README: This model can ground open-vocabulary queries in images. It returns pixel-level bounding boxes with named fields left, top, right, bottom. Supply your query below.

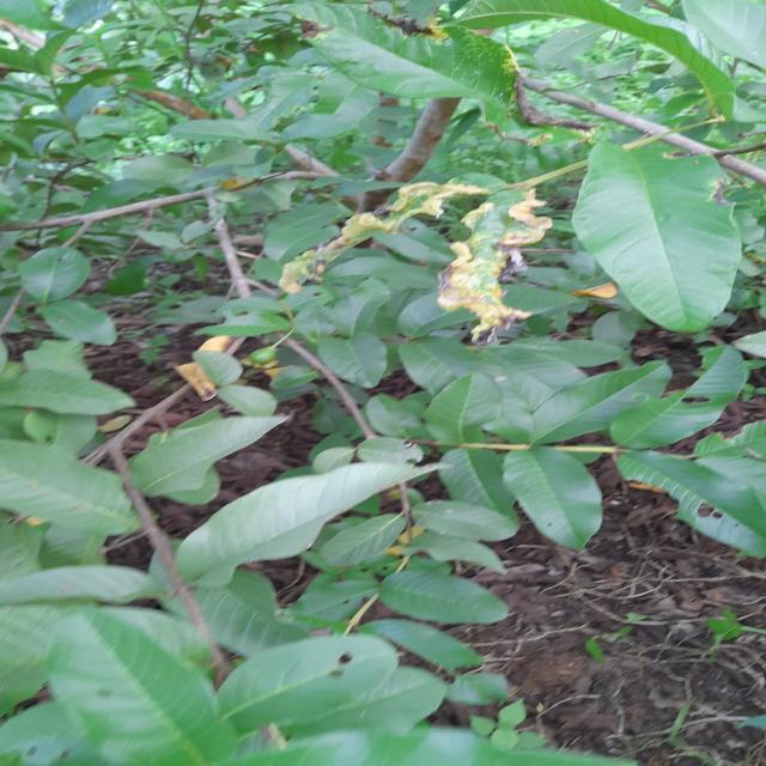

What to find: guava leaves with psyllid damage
left=427, top=174, right=569, bottom=351
left=291, top=153, right=501, bottom=309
